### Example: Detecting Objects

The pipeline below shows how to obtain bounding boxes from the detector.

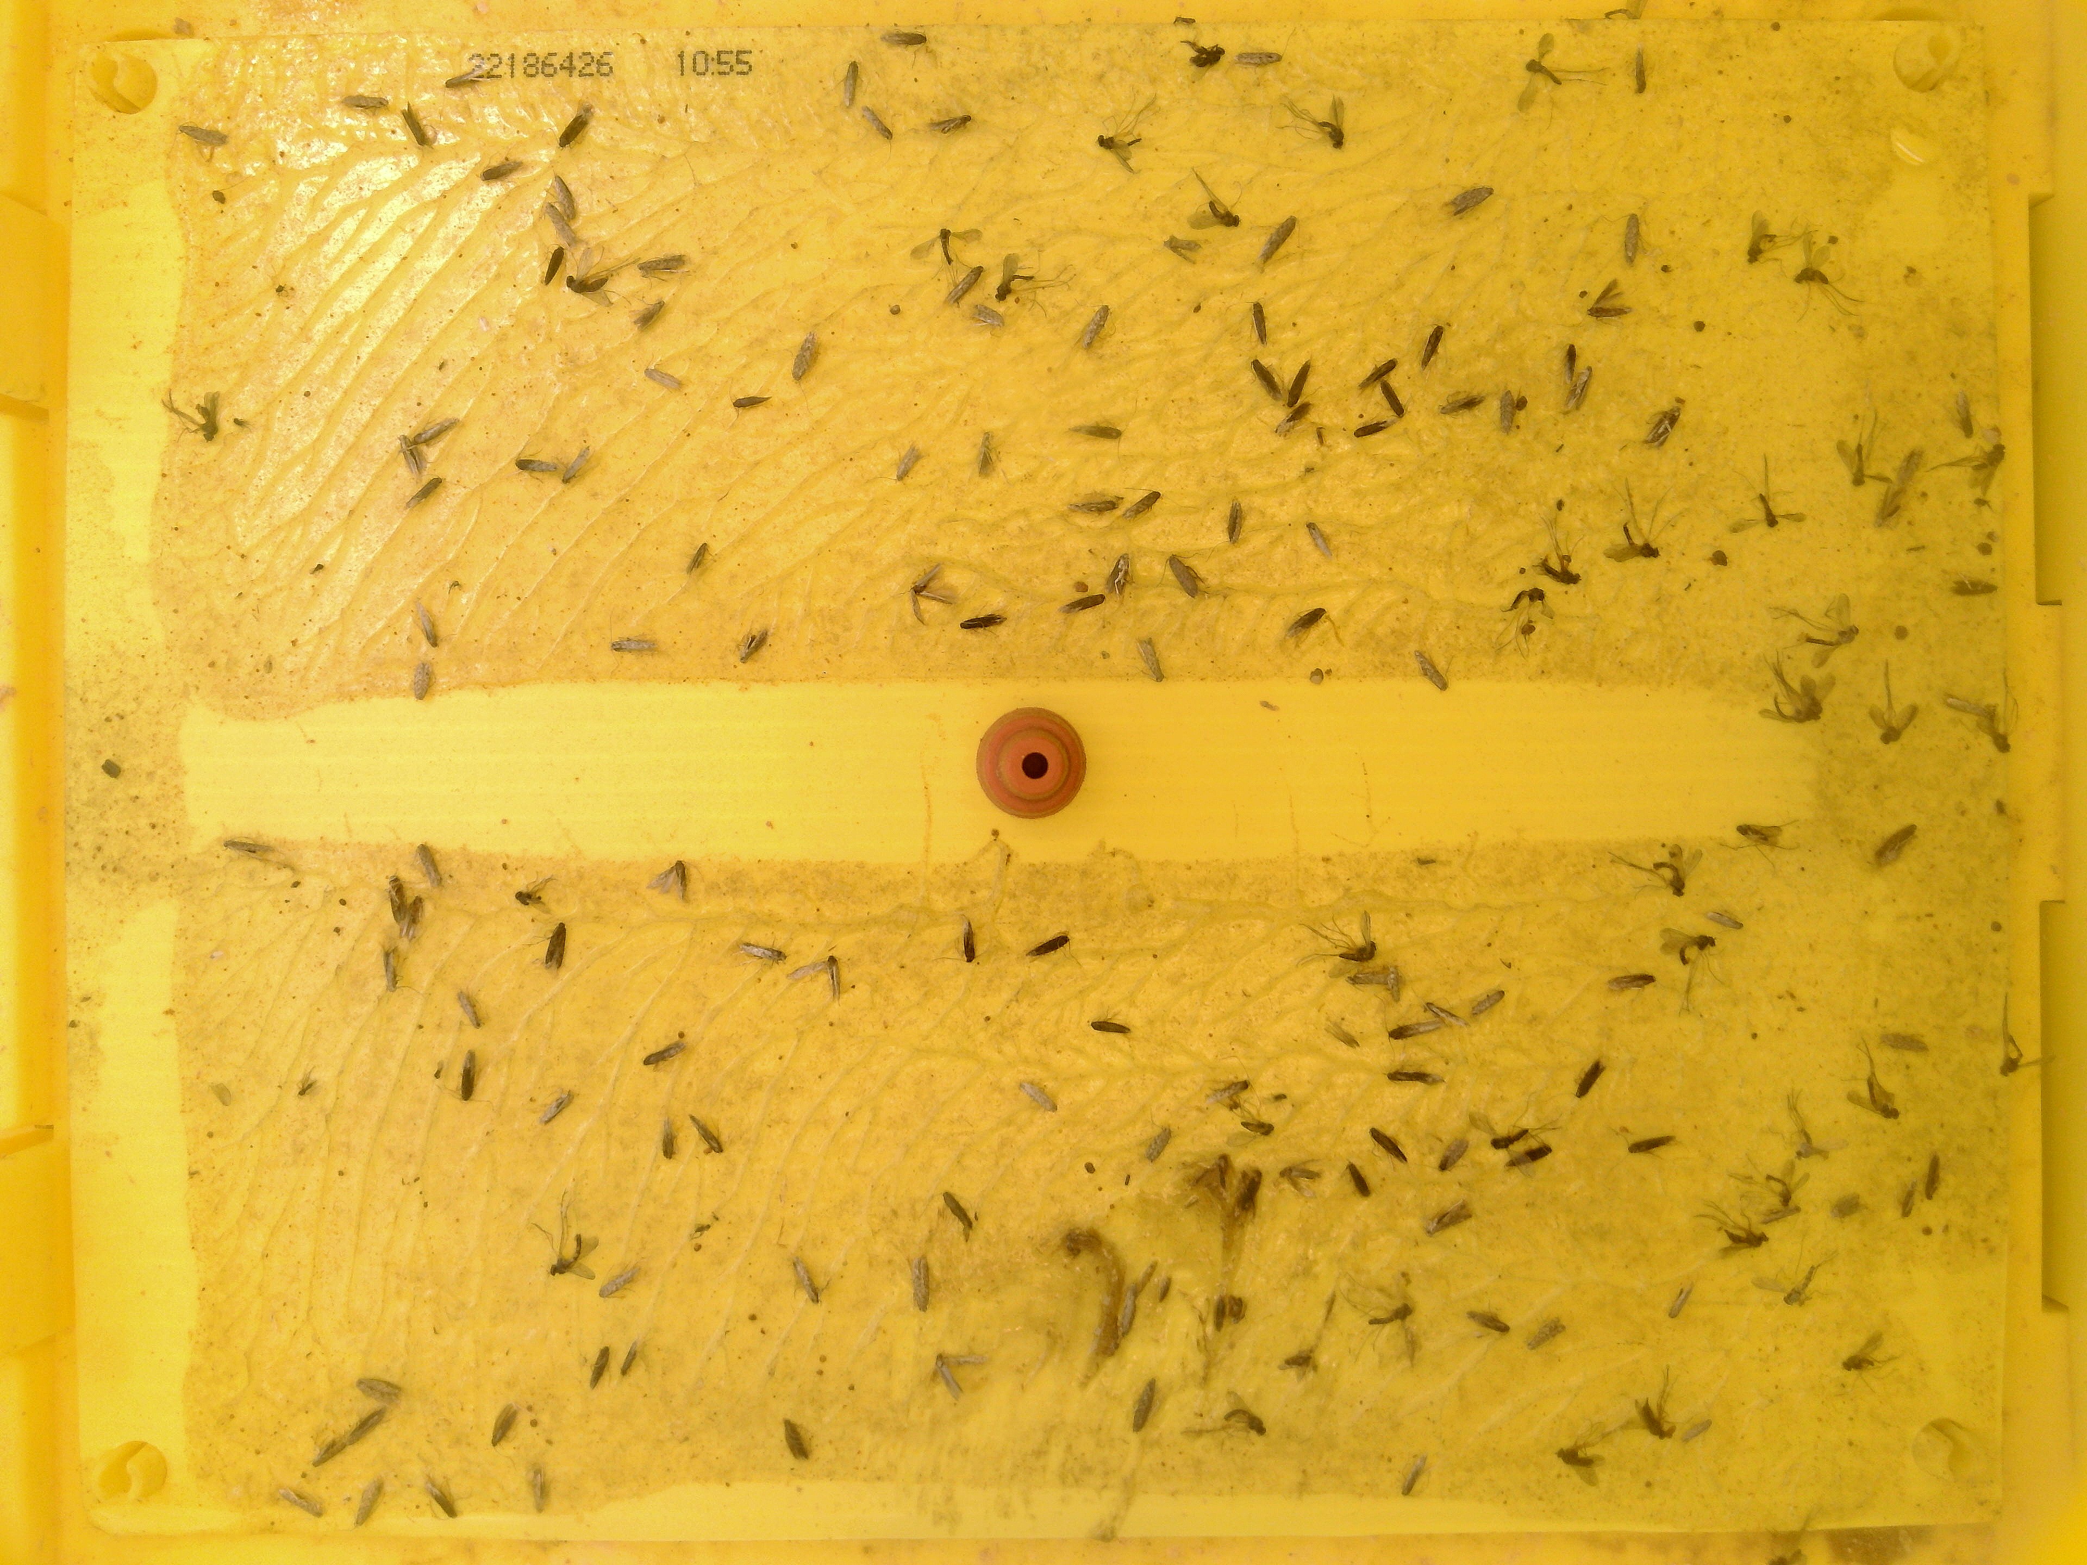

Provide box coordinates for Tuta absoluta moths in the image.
[870,22,927,43]
[1578,1051,1607,1085]
[1143,1117,1175,1160]
[1346,418,1389,436]
[1133,1377,1156,1431]
[724,387,776,410]
[1205,1067,1249,1098]
[1424,1195,1474,1228]
[1018,926,1069,956]
[402,657,439,702]
[728,618,770,671]
[1102,547,1134,591]
[1469,985,1506,1007]
[1430,178,1499,213]
[597,1259,643,1302]
[379,871,426,925]
[1019,1069,1059,1115]
[345,1471,384,1520]
[1398,1451,1433,1506]
[476,151,520,185]
[357,1376,407,1396]
[410,609,444,649]
[953,911,981,958]
[1433,382,1501,409]
[606,631,668,656]
[587,1336,613,1385]
[275,1486,327,1517]
[416,414,450,445]
[1069,300,1109,354]
[940,1183,982,1230]
[1611,967,1666,988]
[855,104,901,141]
[1913,1138,1938,1191]
[178,124,235,160]
[496,1394,520,1445]
[613,1339,640,1385]
[416,839,446,891]
[1103,493,1145,530]
[788,1251,826,1305]
[924,108,964,132]
[1268,395,1314,432]
[550,99,592,151]
[393,422,420,477]
[1220,38,1288,66]
[530,1459,559,1511]
[532,203,573,240]
[652,247,693,284]
[633,354,689,387]
[437,71,478,88]
[629,293,666,329]
[1093,1010,1138,1032]
[1409,640,1455,686]
[1285,603,1329,640]
[1884,1024,1933,1053]
[947,606,1007,638]
[968,300,1008,327]
[1224,496,1253,551]
[455,1042,478,1103]
[1379,375,1413,415]
[1526,1307,1570,1350]
[1240,288,1276,353]
[1419,322,1444,366]
[1069,414,1125,440]
[1290,359,1316,397]
[966,428,1009,480]
[1384,1065,1453,1081]
[906,1248,936,1310]
[838,53,864,106]
[783,330,828,372]
[1619,205,1652,268]
[1666,1270,1698,1319]
[1463,1295,1502,1329]
[1136,1231,1175,1276]
[1626,1129,1675,1151]
[1256,215,1304,262]
[448,985,491,1025]
[726,939,780,963]
[649,850,686,896]
[881,443,925,483]
[1167,545,1216,588]
[539,243,561,285]
[512,450,565,477]
[405,104,444,151]
[1162,227,1196,256]
[1133,628,1163,678]
[1427,1132,1471,1171]
[686,534,709,576]
[218,827,272,857]
[536,1085,579,1130]
[338,88,390,107]
[545,916,579,967]
[1510,1136,1556,1171]
[1299,520,1340,553]
[1035,1314,1083,1345]
[1023,1329,1044,1373]
[1375,1019,1430,1038]
[940,264,976,301]
[1047,590,1099,615]
[543,167,582,207]
[638,1027,681,1068]
[380,939,410,996]
[562,447,591,486]
[1359,1123,1406,1157]
[781,1409,813,1455]
[390,484,432,519]
[423,1458,461,1510]
[1876,813,1918,863]
[1380,959,1408,997]
[651,1109,678,1159]
[686,1106,730,1151]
